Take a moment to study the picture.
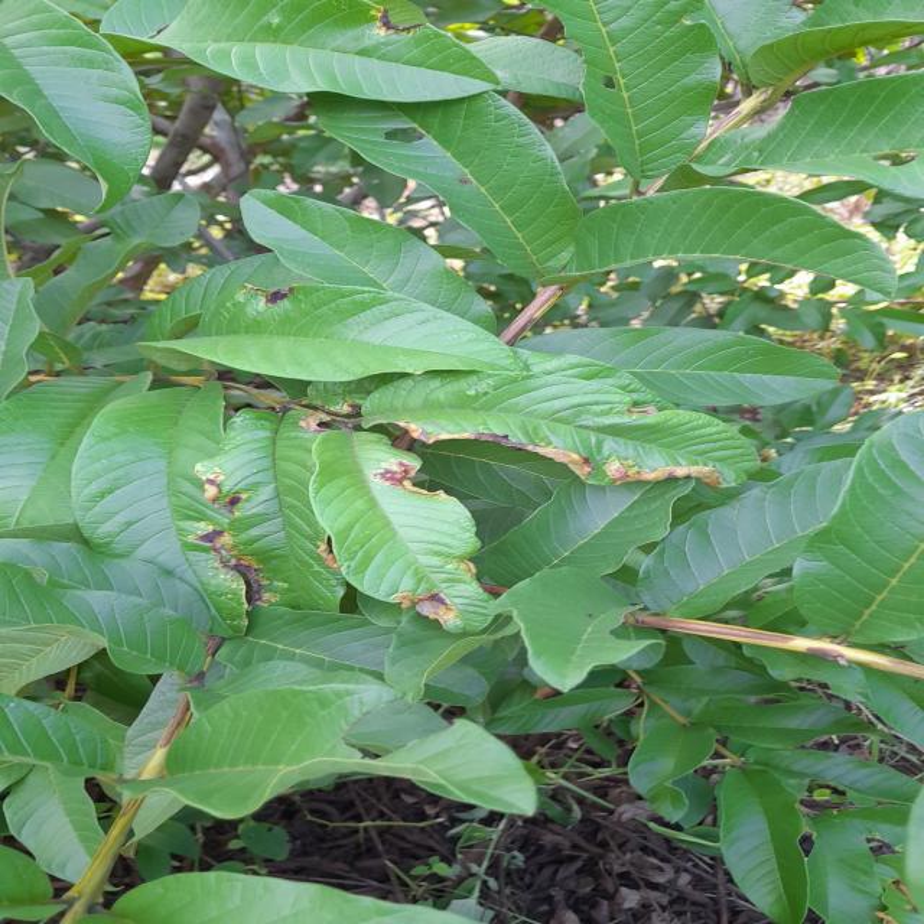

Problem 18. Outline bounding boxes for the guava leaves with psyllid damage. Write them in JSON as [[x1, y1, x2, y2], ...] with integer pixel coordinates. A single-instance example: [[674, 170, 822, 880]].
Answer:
[[345, 352, 770, 487], [284, 426, 519, 640]]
